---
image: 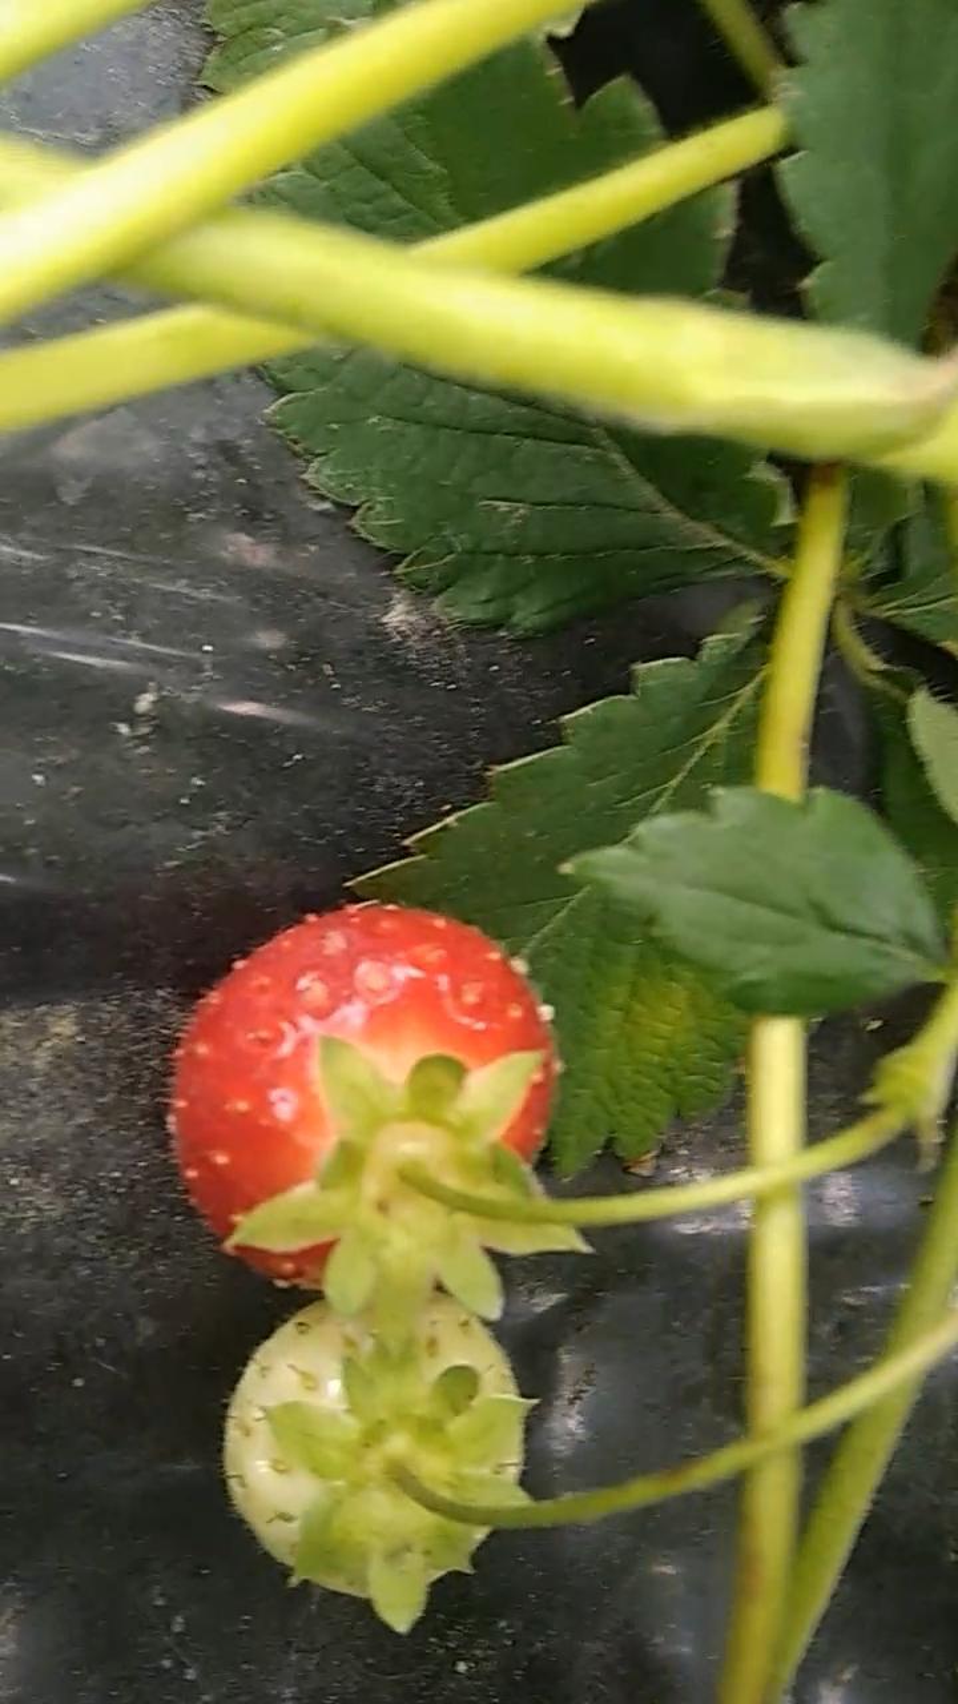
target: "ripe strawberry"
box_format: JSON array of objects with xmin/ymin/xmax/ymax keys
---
[{"xmin": 144, "ymin": 889, "xmax": 561, "ymax": 1281}]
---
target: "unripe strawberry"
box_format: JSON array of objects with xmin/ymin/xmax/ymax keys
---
[{"xmin": 209, "ymin": 1300, "xmax": 543, "ymax": 1619}]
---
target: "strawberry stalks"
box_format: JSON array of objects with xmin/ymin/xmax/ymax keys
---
[
  {"xmin": 348, "ymin": 1104, "xmax": 722, "ymax": 1252},
  {"xmin": 351, "ymin": 1401, "xmax": 766, "ymax": 1556}
]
